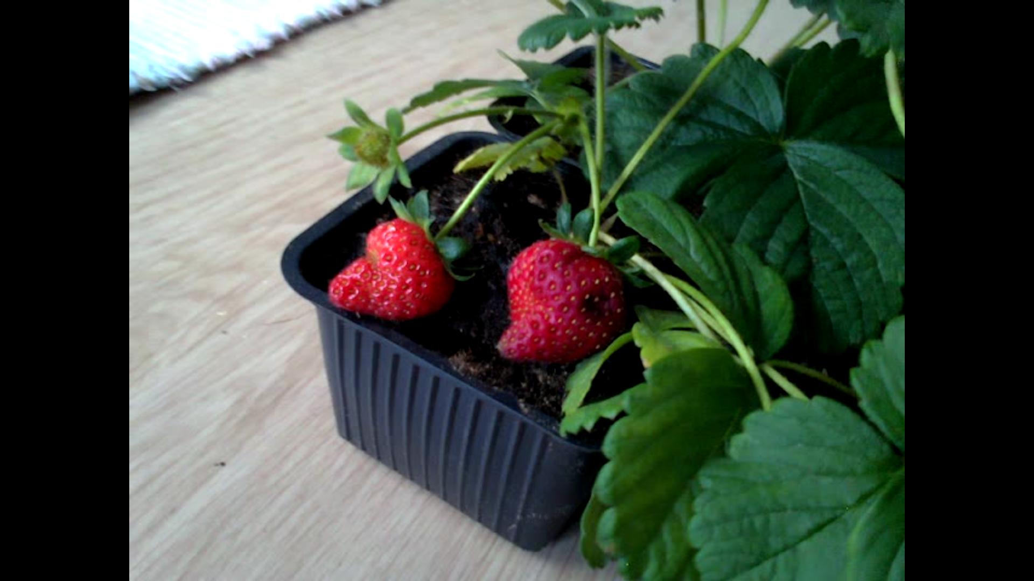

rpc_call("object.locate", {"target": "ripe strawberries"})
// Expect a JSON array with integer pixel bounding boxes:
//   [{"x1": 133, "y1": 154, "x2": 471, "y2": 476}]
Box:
[
  {"x1": 325, "y1": 199, "x2": 447, "y2": 334},
  {"x1": 515, "y1": 221, "x2": 637, "y2": 366}
]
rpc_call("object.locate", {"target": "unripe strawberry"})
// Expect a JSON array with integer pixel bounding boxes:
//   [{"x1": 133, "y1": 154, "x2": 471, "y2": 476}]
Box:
[{"x1": 349, "y1": 118, "x2": 401, "y2": 170}]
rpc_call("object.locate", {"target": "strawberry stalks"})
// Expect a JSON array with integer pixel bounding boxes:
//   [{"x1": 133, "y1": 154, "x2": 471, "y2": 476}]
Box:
[
  {"x1": 414, "y1": 136, "x2": 548, "y2": 250},
  {"x1": 388, "y1": 112, "x2": 467, "y2": 148},
  {"x1": 564, "y1": 143, "x2": 623, "y2": 277}
]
